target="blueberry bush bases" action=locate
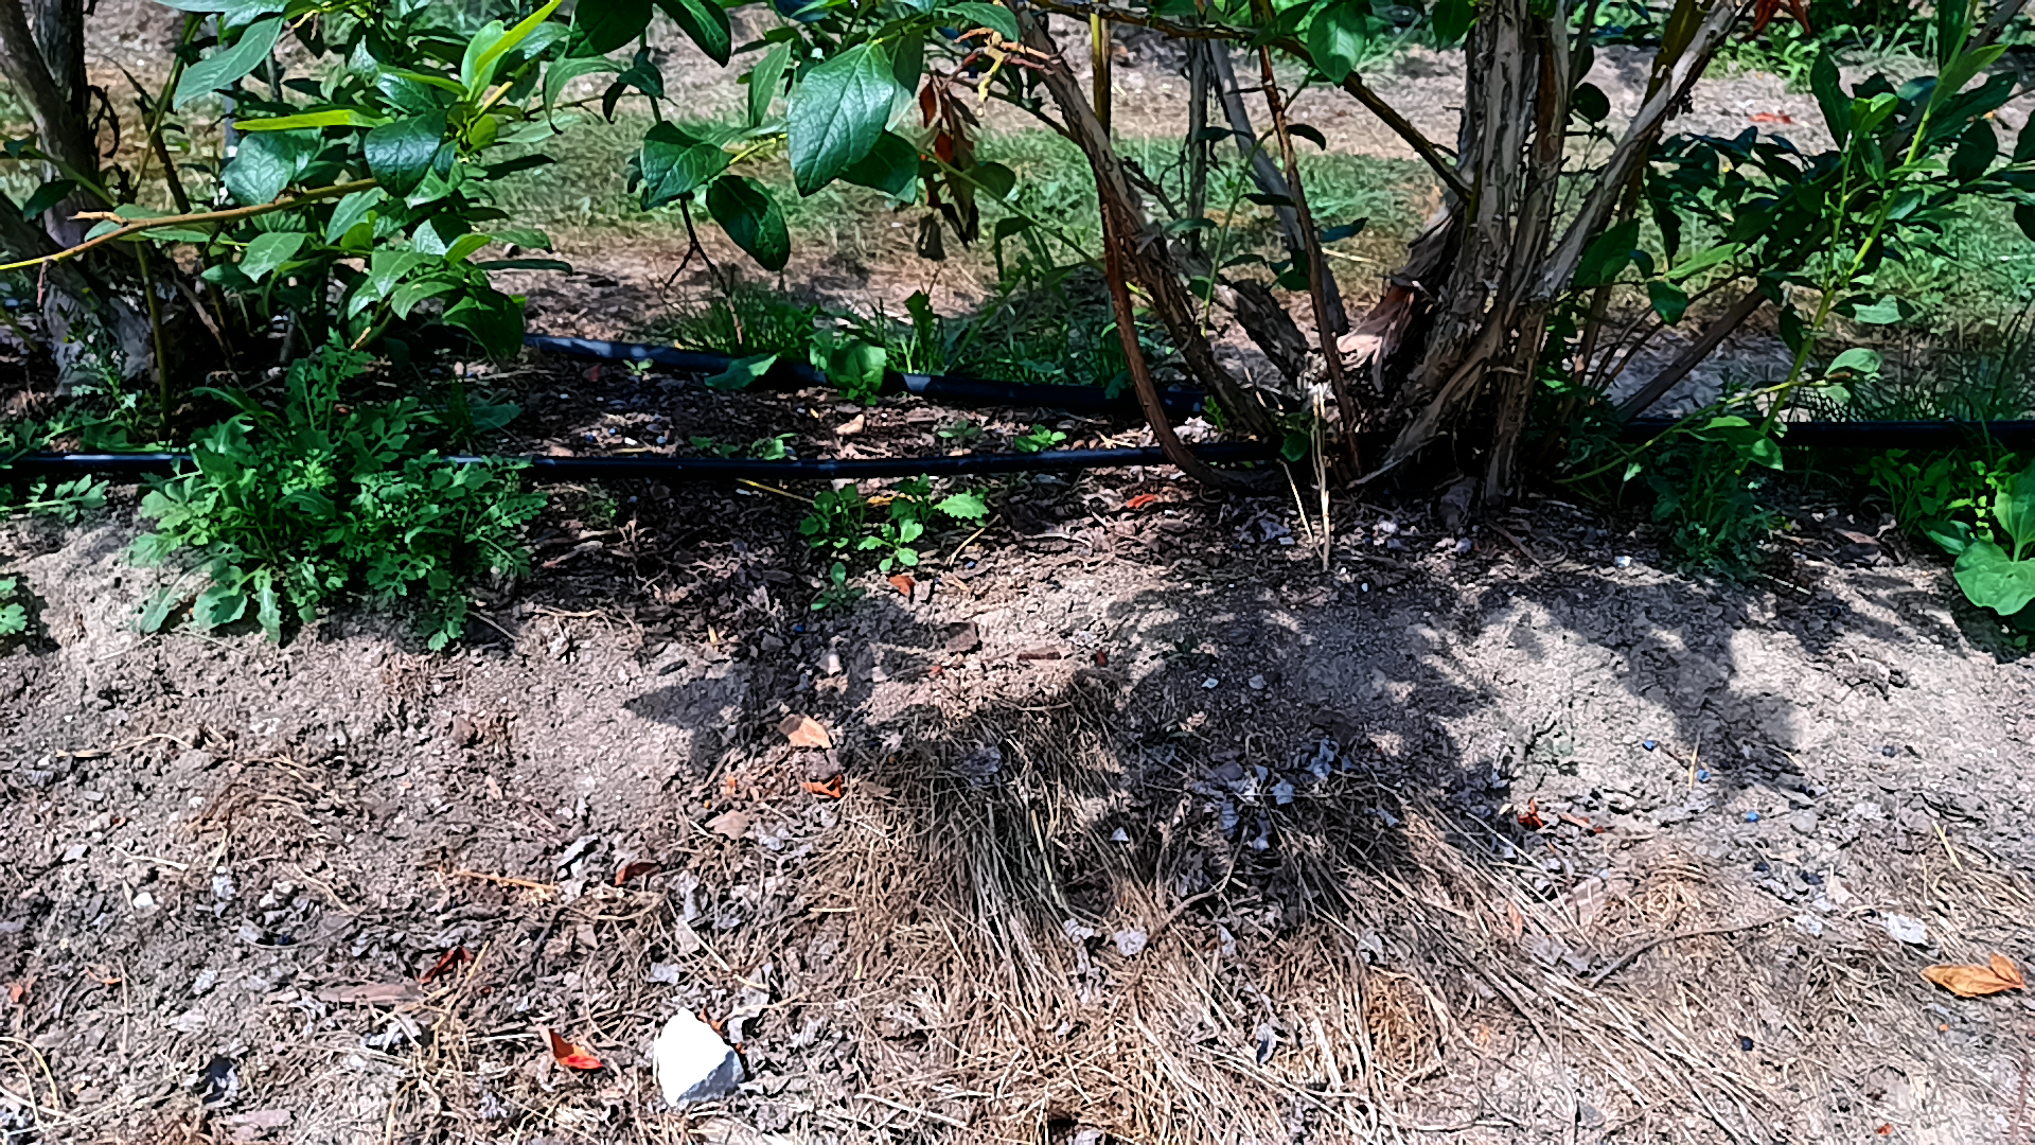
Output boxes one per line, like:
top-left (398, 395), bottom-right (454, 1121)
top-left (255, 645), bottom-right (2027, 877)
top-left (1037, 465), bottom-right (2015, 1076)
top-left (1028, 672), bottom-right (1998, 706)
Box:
top-left (0, 173), bottom-right (440, 511)
top-left (1097, 210), bottom-right (1685, 574)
